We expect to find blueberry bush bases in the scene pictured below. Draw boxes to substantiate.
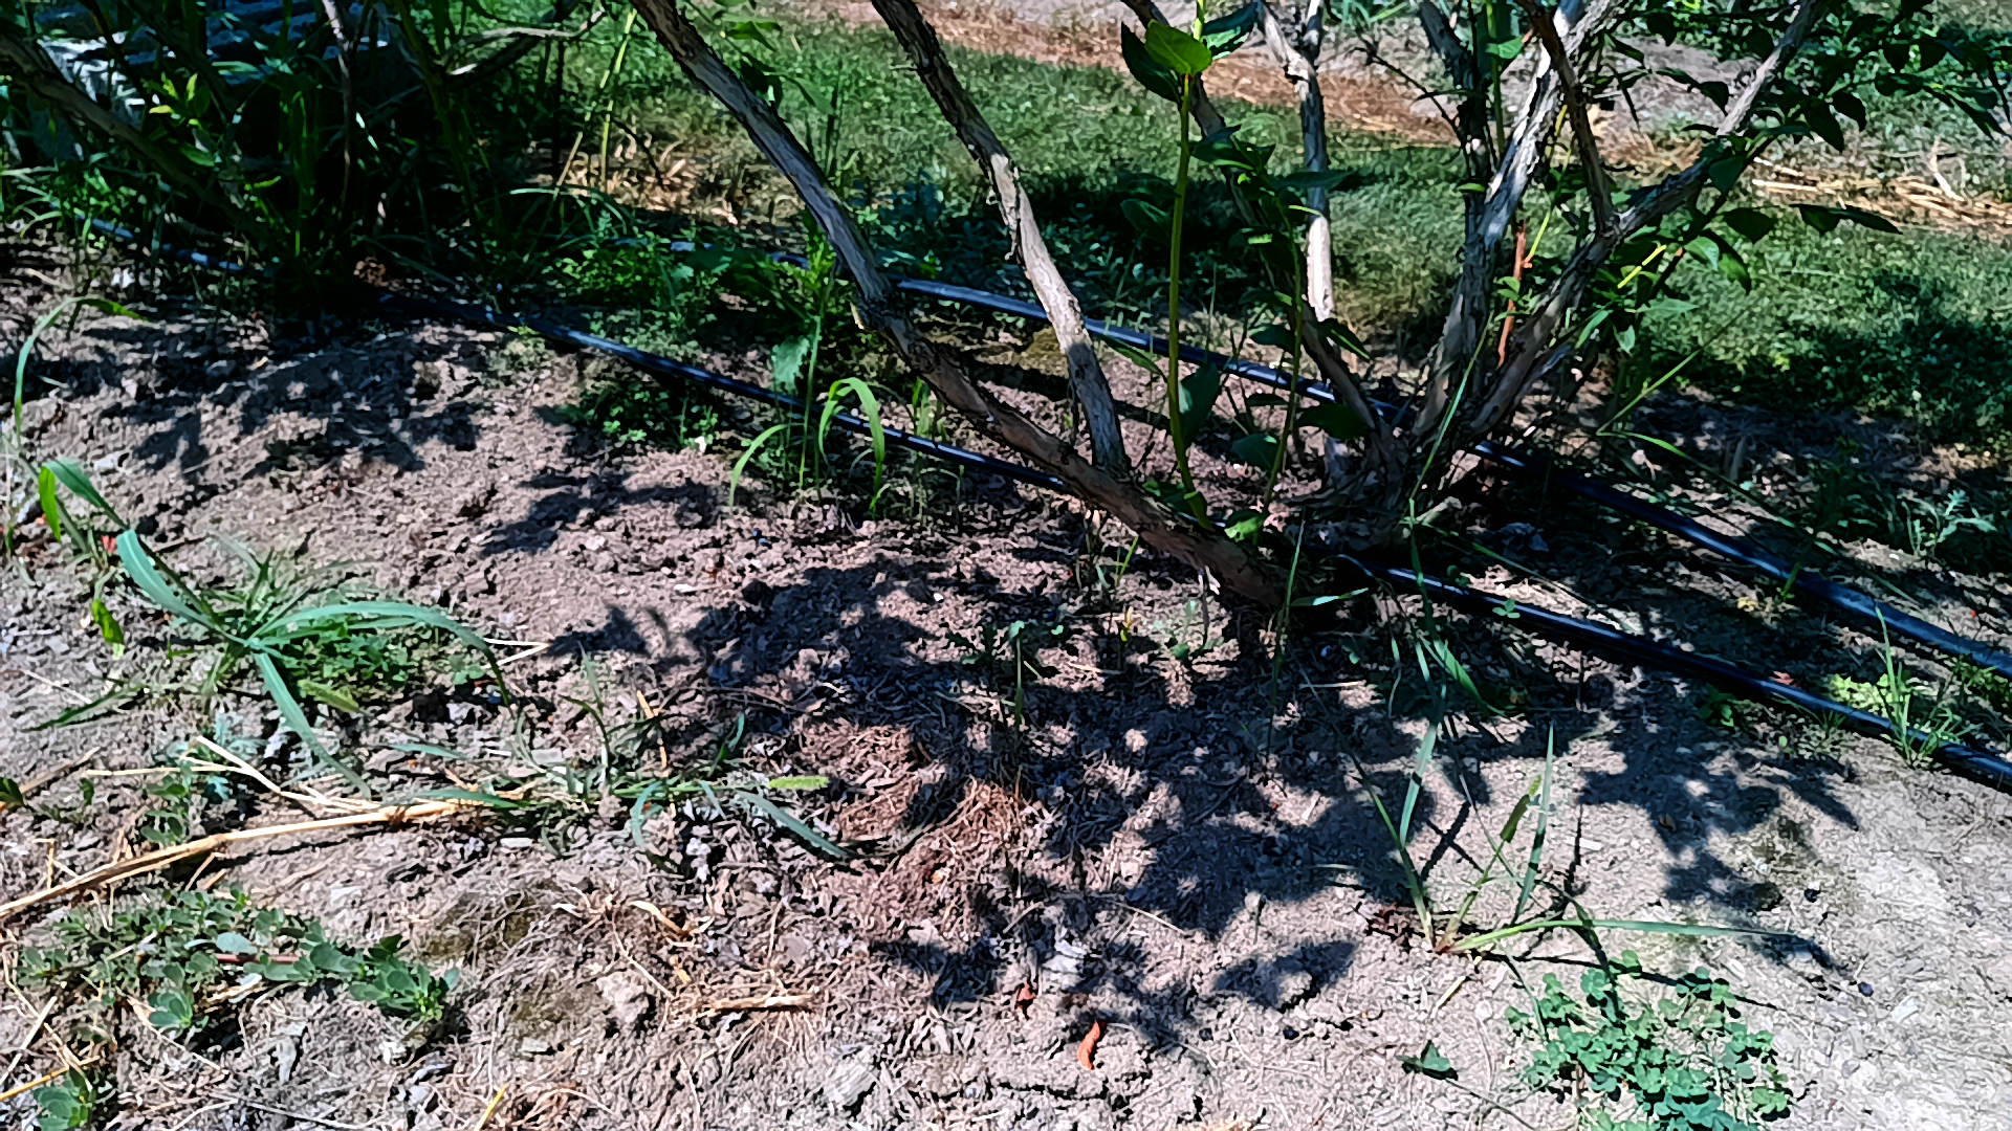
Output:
[922,203,1642,737]
[105,78,495,383]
